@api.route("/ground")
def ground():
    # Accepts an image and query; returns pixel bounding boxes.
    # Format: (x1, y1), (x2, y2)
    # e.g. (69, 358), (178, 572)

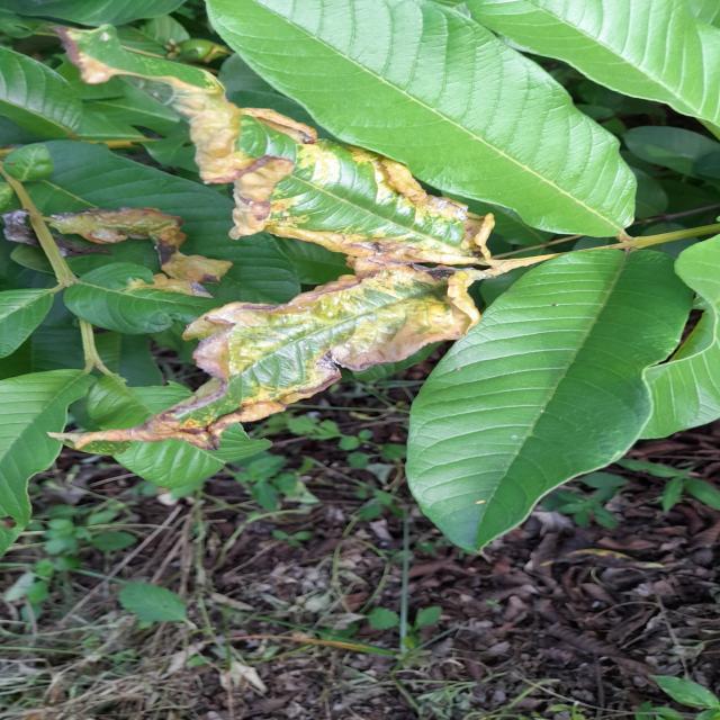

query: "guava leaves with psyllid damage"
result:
(36, 17), (530, 258)
(18, 265), (519, 457)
